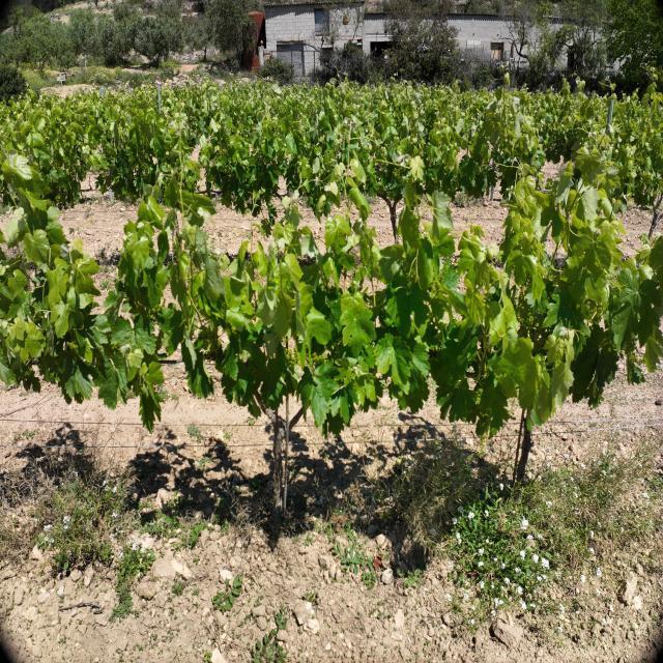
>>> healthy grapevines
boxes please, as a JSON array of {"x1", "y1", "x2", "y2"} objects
[
  {"x1": 48, "y1": 207, "x2": 429, "y2": 541},
  {"x1": 392, "y1": 169, "x2": 663, "y2": 515}
]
